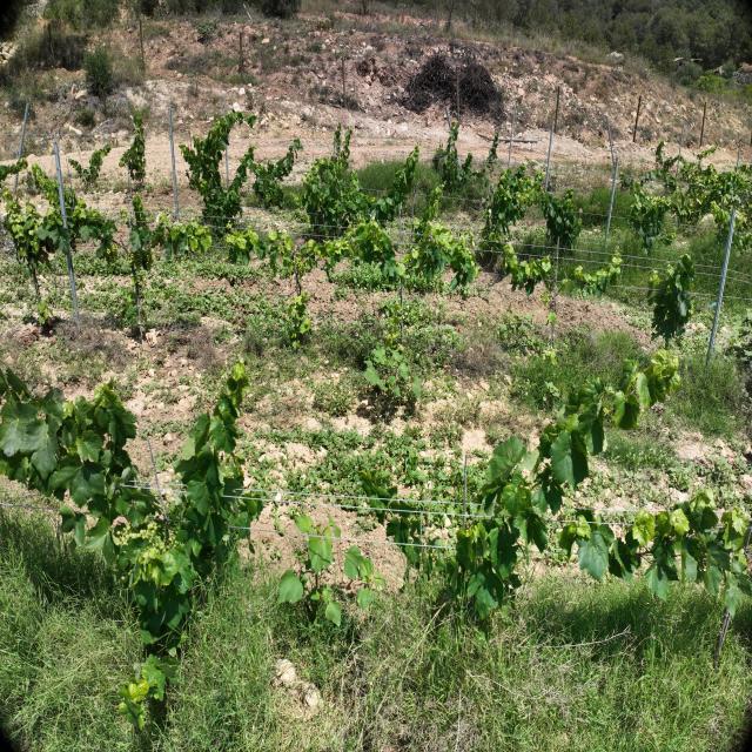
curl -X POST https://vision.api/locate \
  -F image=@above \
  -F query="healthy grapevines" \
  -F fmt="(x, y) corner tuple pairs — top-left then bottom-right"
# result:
(267, 495), (386, 663)
(421, 338), (752, 682)
(0, 355), (268, 713)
